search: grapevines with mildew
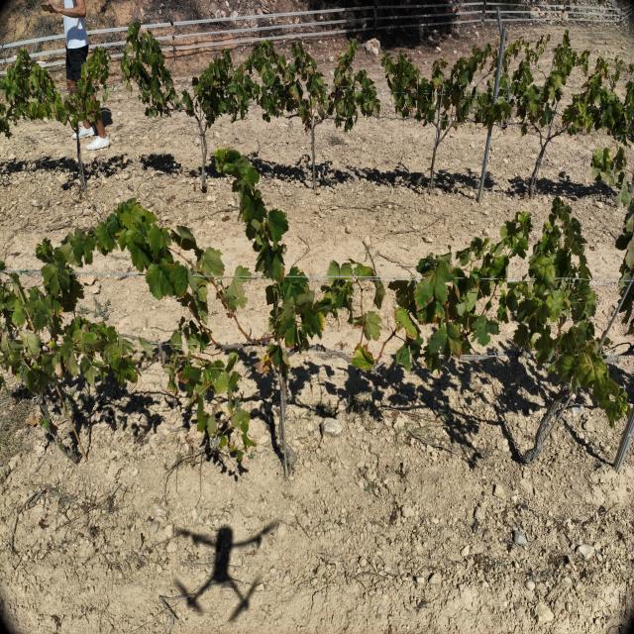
[0,192,144,485]
[385,190,634,480]
[128,144,388,494]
